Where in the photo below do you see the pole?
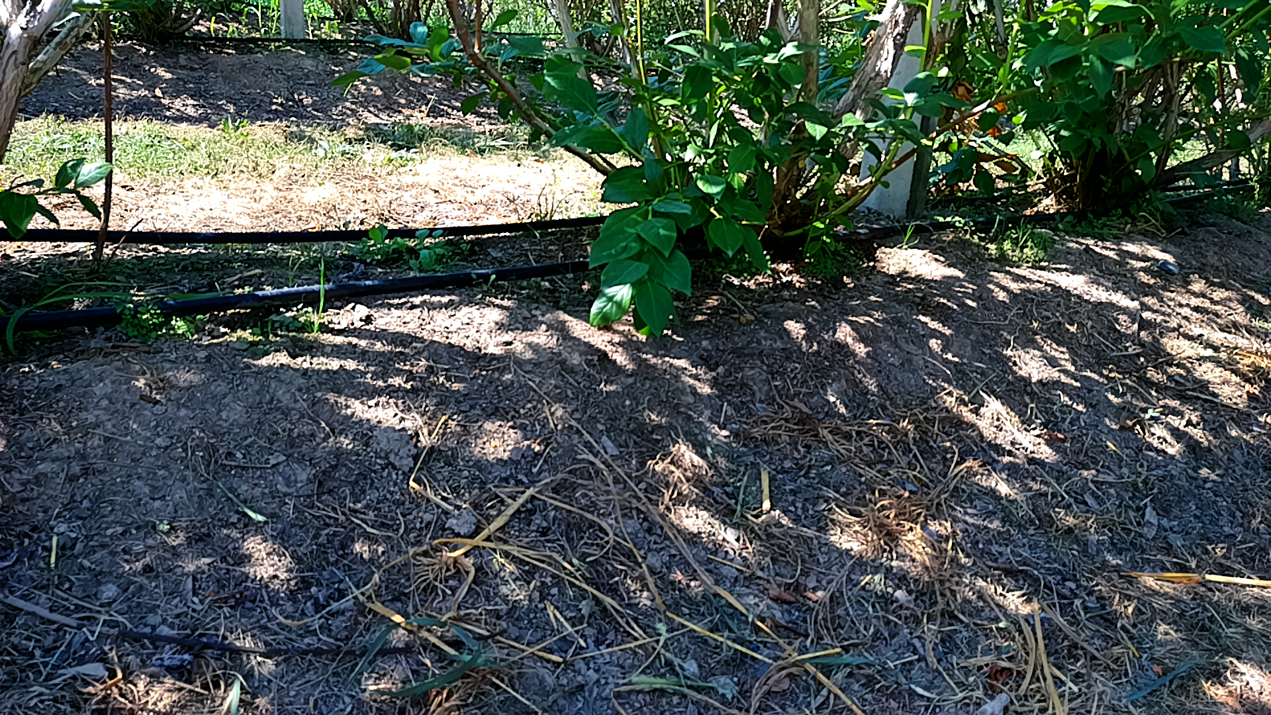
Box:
[843,3,948,231]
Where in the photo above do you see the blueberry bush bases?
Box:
[580,75,852,303]
[1000,0,1270,232]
